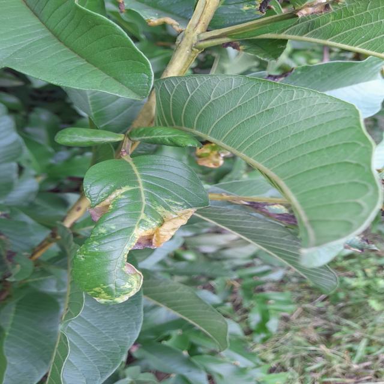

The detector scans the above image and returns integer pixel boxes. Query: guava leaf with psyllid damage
[68,149,214,308]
